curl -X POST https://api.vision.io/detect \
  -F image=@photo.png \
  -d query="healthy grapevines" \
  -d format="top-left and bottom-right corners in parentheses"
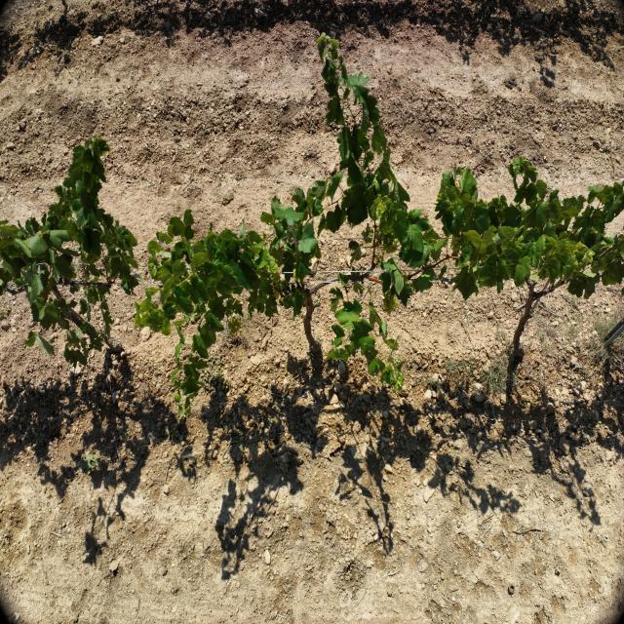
top-left (0, 128), bottom-right (138, 389)
top-left (131, 80), bottom-right (477, 409)
top-left (434, 142), bottom-right (624, 369)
